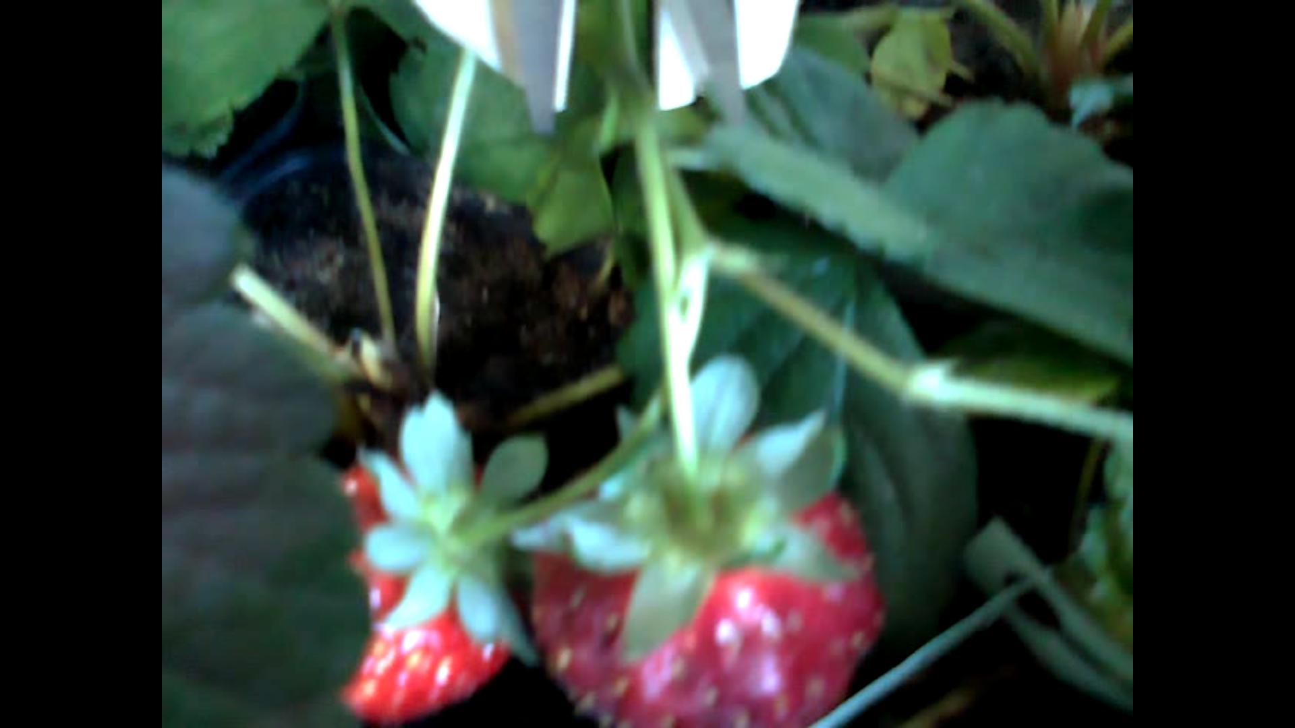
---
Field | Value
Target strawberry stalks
[606,87,766,557]
[398,415,660,606]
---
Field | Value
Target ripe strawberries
[250,407,561,728]
[536,406,928,696]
